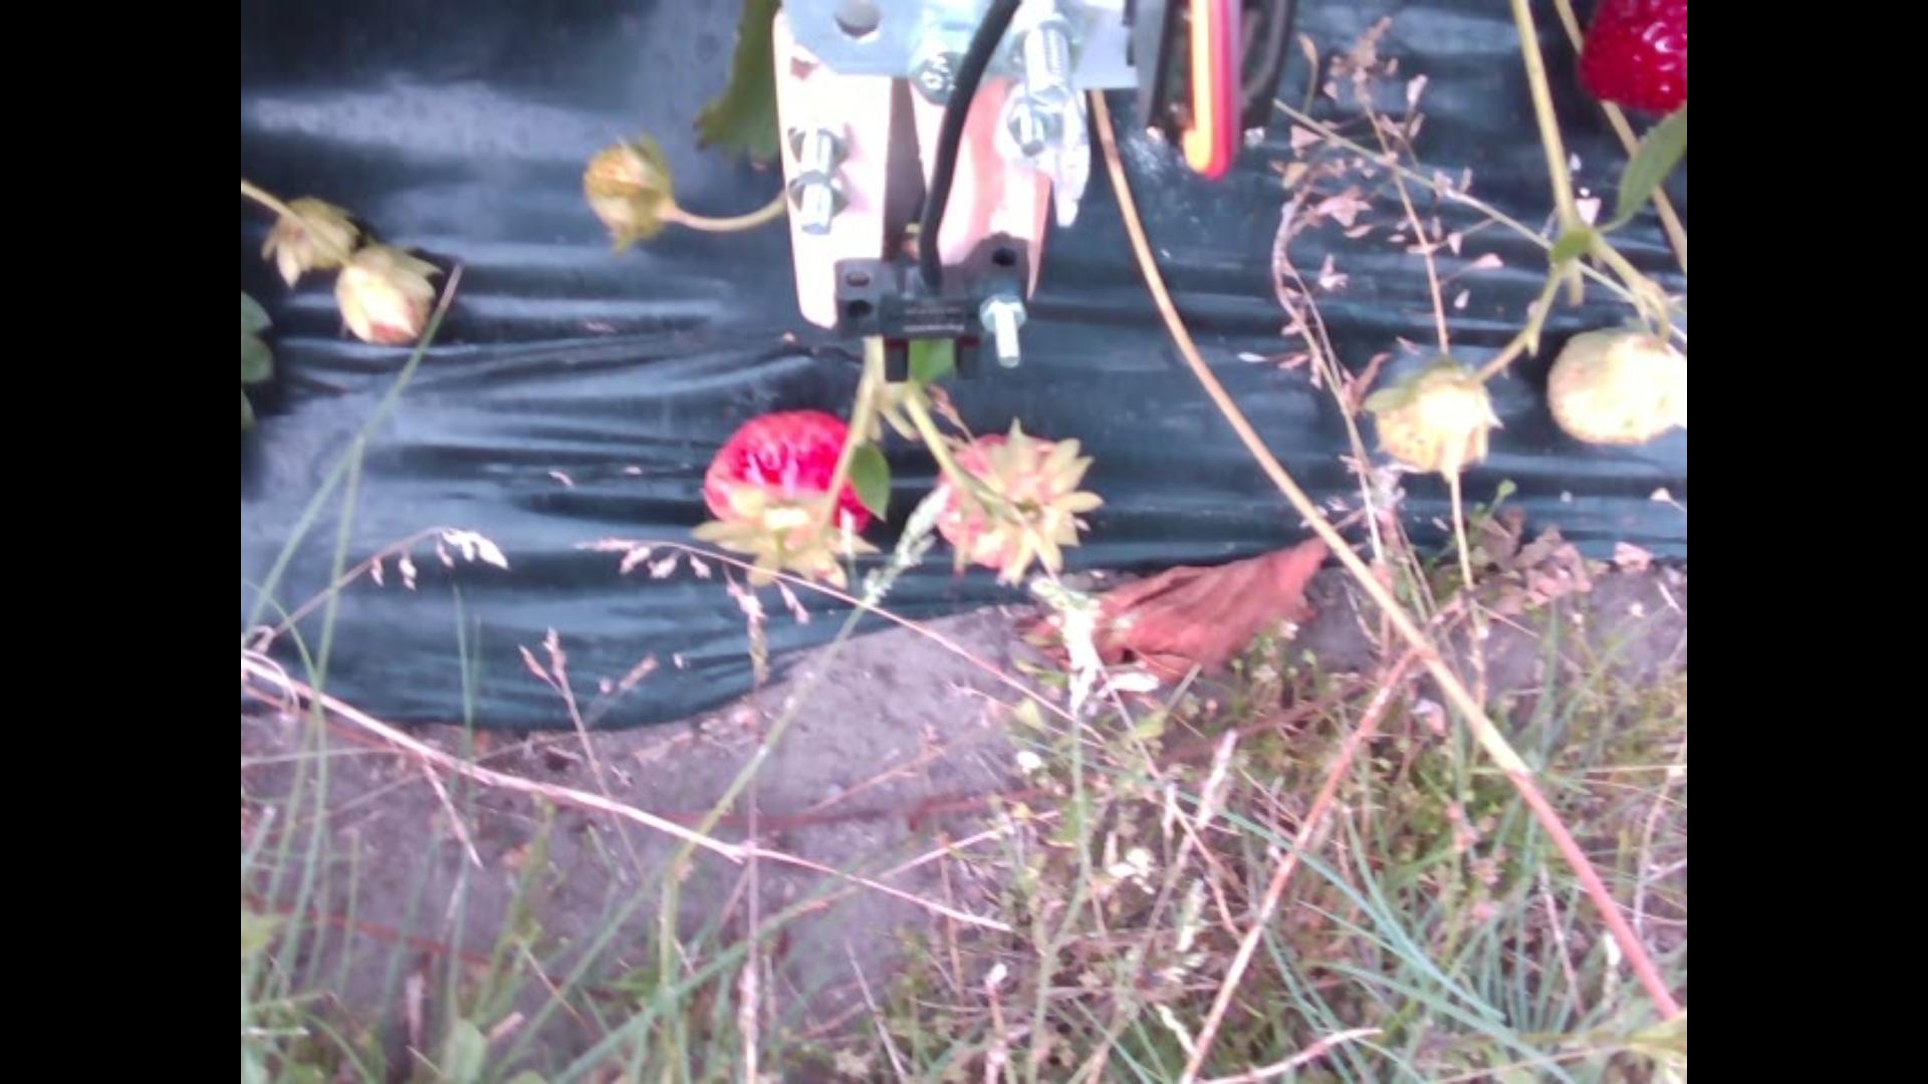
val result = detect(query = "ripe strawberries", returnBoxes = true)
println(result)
[1576,0,1681,139]
[667,398,892,565]
[927,433,1093,583]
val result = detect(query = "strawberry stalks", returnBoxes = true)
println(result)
[1440,326,1541,399]
[309,250,394,290]
[249,184,314,242]
[1621,262,1685,361]
[779,418,883,564]
[652,180,759,244]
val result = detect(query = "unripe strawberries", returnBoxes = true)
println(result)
[577,133,688,256]
[328,255,447,351]
[1551,327,1693,455]
[1361,350,1489,478]
[269,184,372,289]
